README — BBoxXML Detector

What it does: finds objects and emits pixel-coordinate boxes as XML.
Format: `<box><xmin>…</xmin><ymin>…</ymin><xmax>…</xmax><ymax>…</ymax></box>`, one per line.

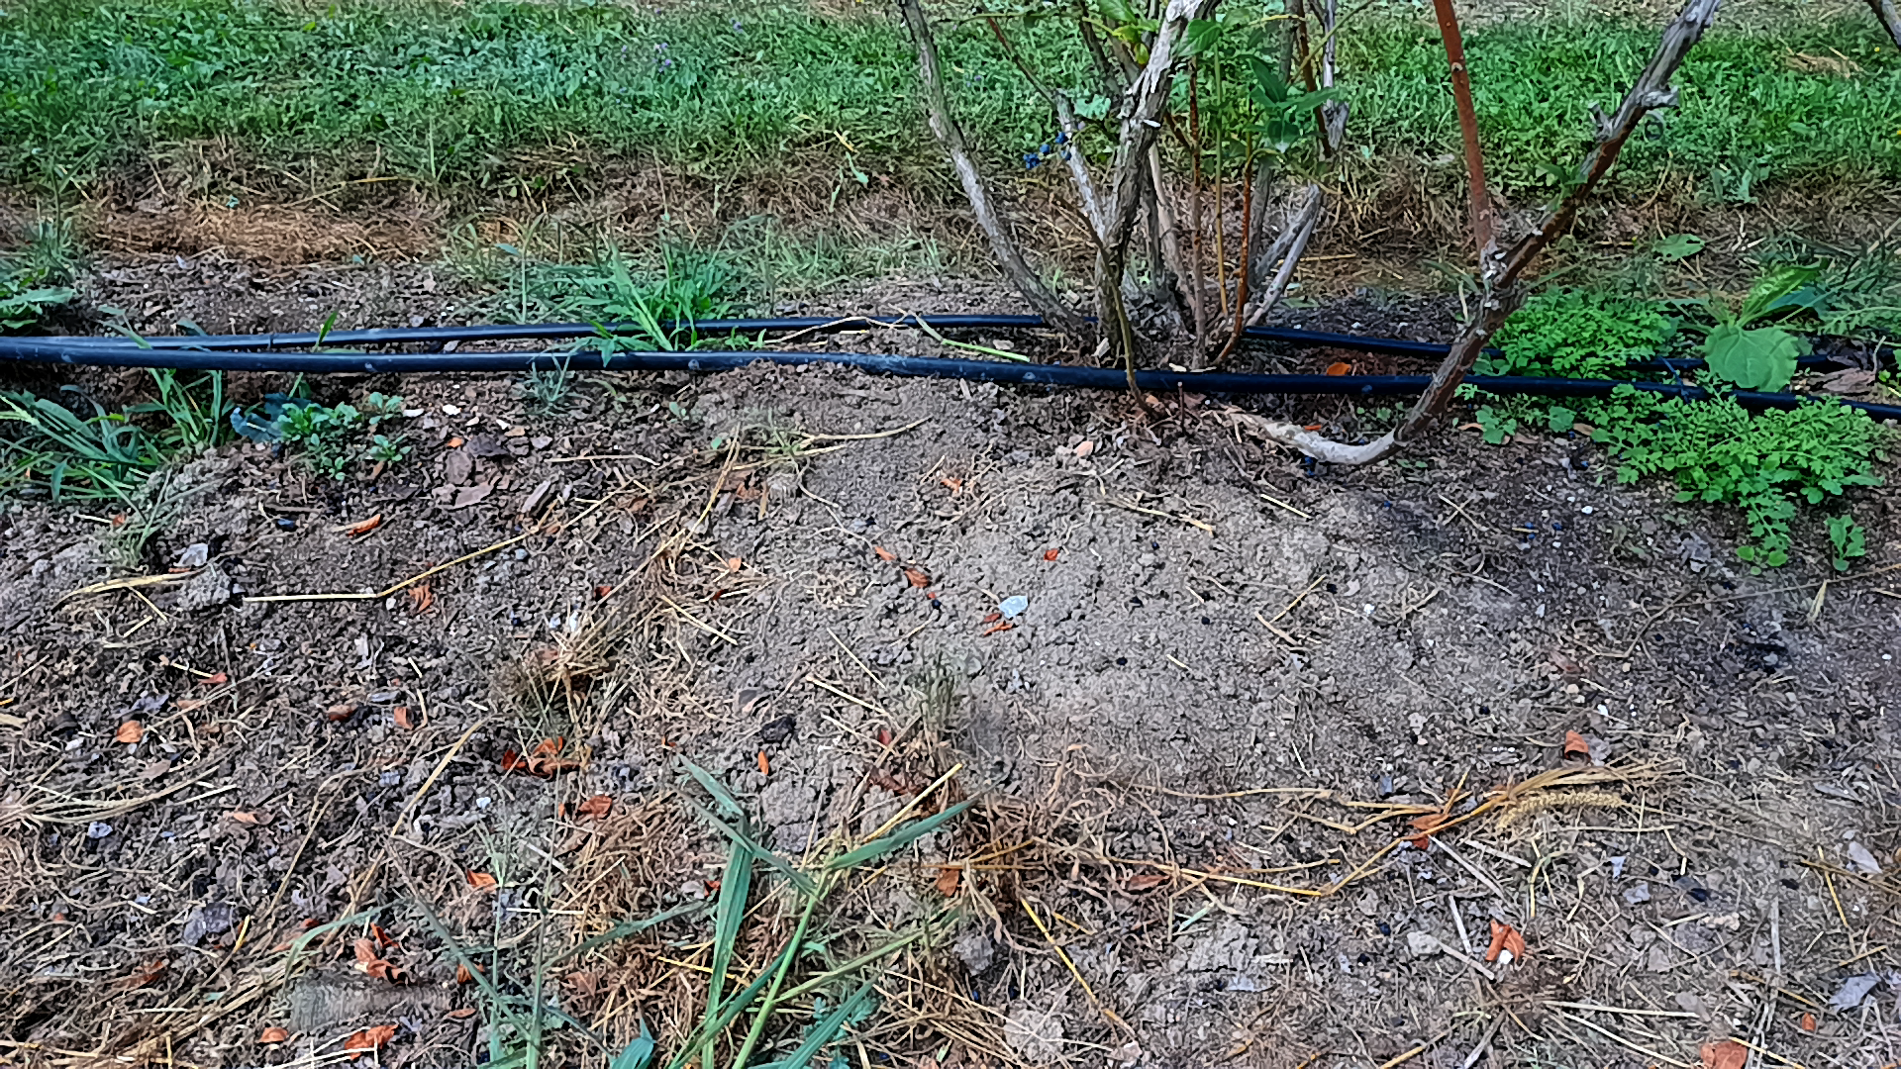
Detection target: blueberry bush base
<box><xmin>929</xmin><ymin>144</ymin><xmax>1445</xmax><ymax>480</ymax></box>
